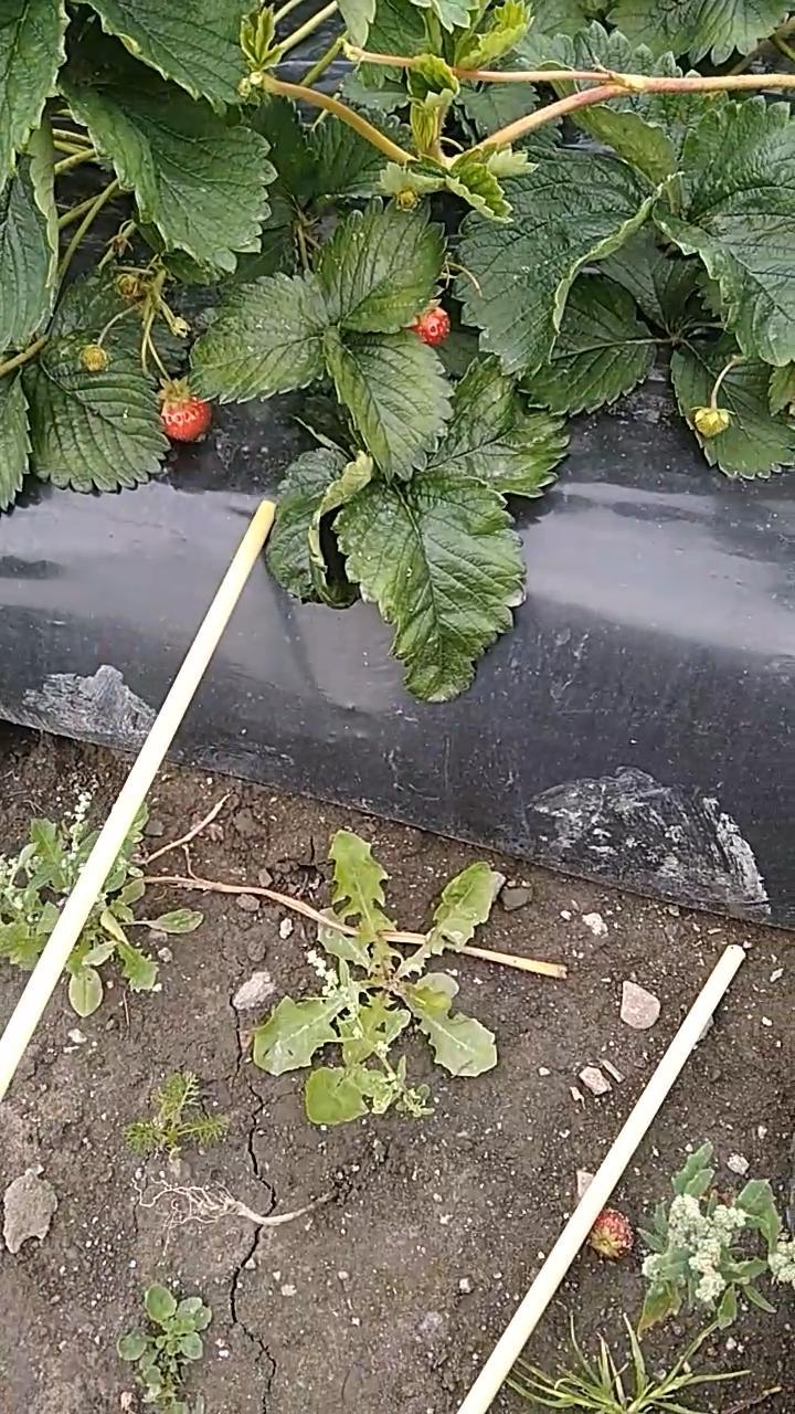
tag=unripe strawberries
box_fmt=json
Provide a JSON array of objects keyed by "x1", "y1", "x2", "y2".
[
  {"x1": 80, "y1": 342, "x2": 110, "y2": 372},
  {"x1": 692, "y1": 405, "x2": 734, "y2": 440}
]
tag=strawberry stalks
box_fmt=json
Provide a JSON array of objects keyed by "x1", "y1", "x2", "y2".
[
  {"x1": 145, "y1": 320, "x2": 176, "y2": 400},
  {"x1": 707, "y1": 362, "x2": 727, "y2": 419}
]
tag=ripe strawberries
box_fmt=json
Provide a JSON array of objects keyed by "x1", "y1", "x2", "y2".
[
  {"x1": 160, "y1": 382, "x2": 218, "y2": 445},
  {"x1": 412, "y1": 304, "x2": 456, "y2": 345}
]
